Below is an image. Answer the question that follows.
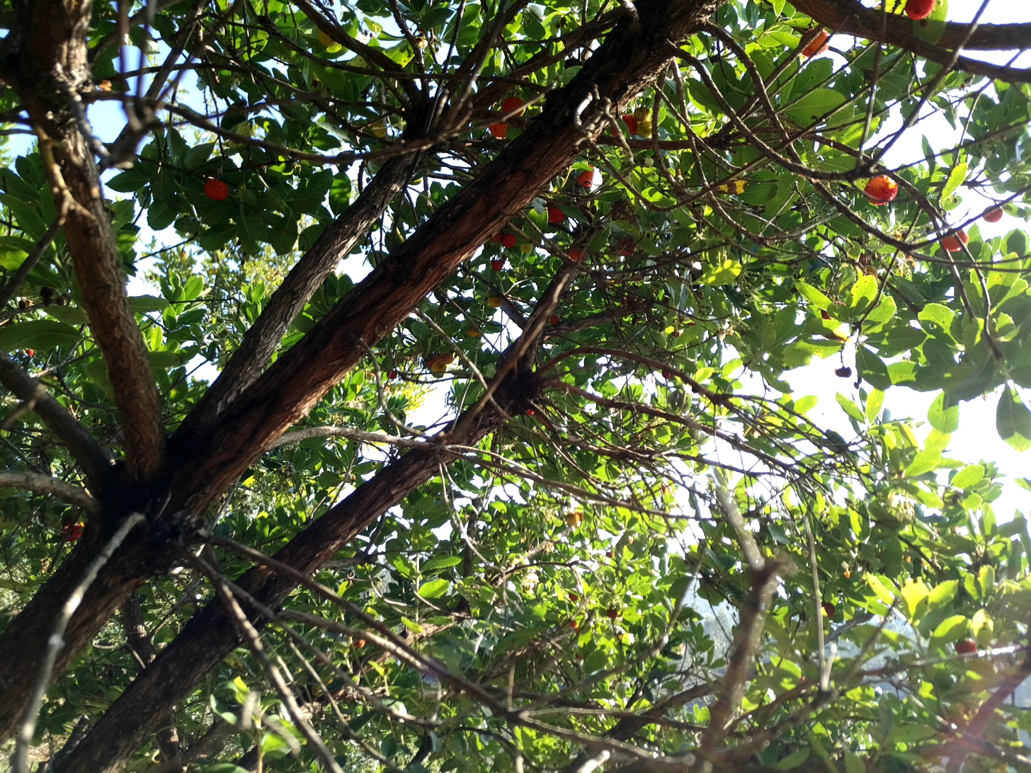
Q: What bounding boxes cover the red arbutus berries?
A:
[617,236,636,257]
[61,522,84,542]
[569,591,579,601]
[550,315,560,325]
[387,370,397,379]
[577,164,595,188]
[611,112,637,136]
[492,260,502,271]
[800,27,830,58]
[502,96,525,117]
[526,408,535,416]
[902,0,937,20]
[821,602,837,619]
[941,228,970,252]
[956,636,980,657]
[204,179,229,201]
[983,206,1004,223]
[488,119,511,138]
[608,609,618,618]
[570,247,589,264]
[865,174,901,206]
[606,552,613,558]
[502,233,516,248]
[546,204,565,223]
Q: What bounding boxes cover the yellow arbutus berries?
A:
[566,513,579,525]
[488,295,502,307]
[467,326,482,337]
[443,354,454,364]
[569,621,578,629]
[634,106,653,121]
[635,121,655,138]
[432,360,446,374]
